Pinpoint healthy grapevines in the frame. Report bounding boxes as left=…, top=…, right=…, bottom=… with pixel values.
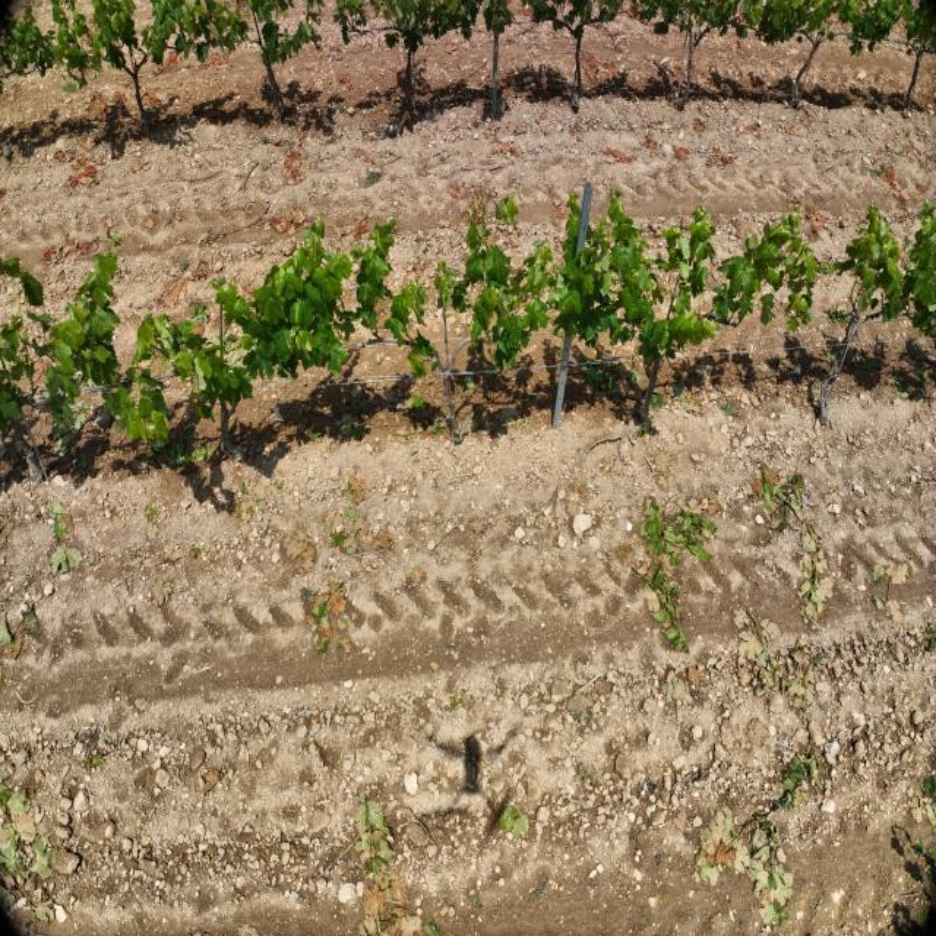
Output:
left=556, top=205, right=795, bottom=447
left=347, top=215, right=556, bottom=467
left=782, top=203, right=936, bottom=445
left=0, top=234, right=91, bottom=499
left=88, top=218, right=342, bottom=483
